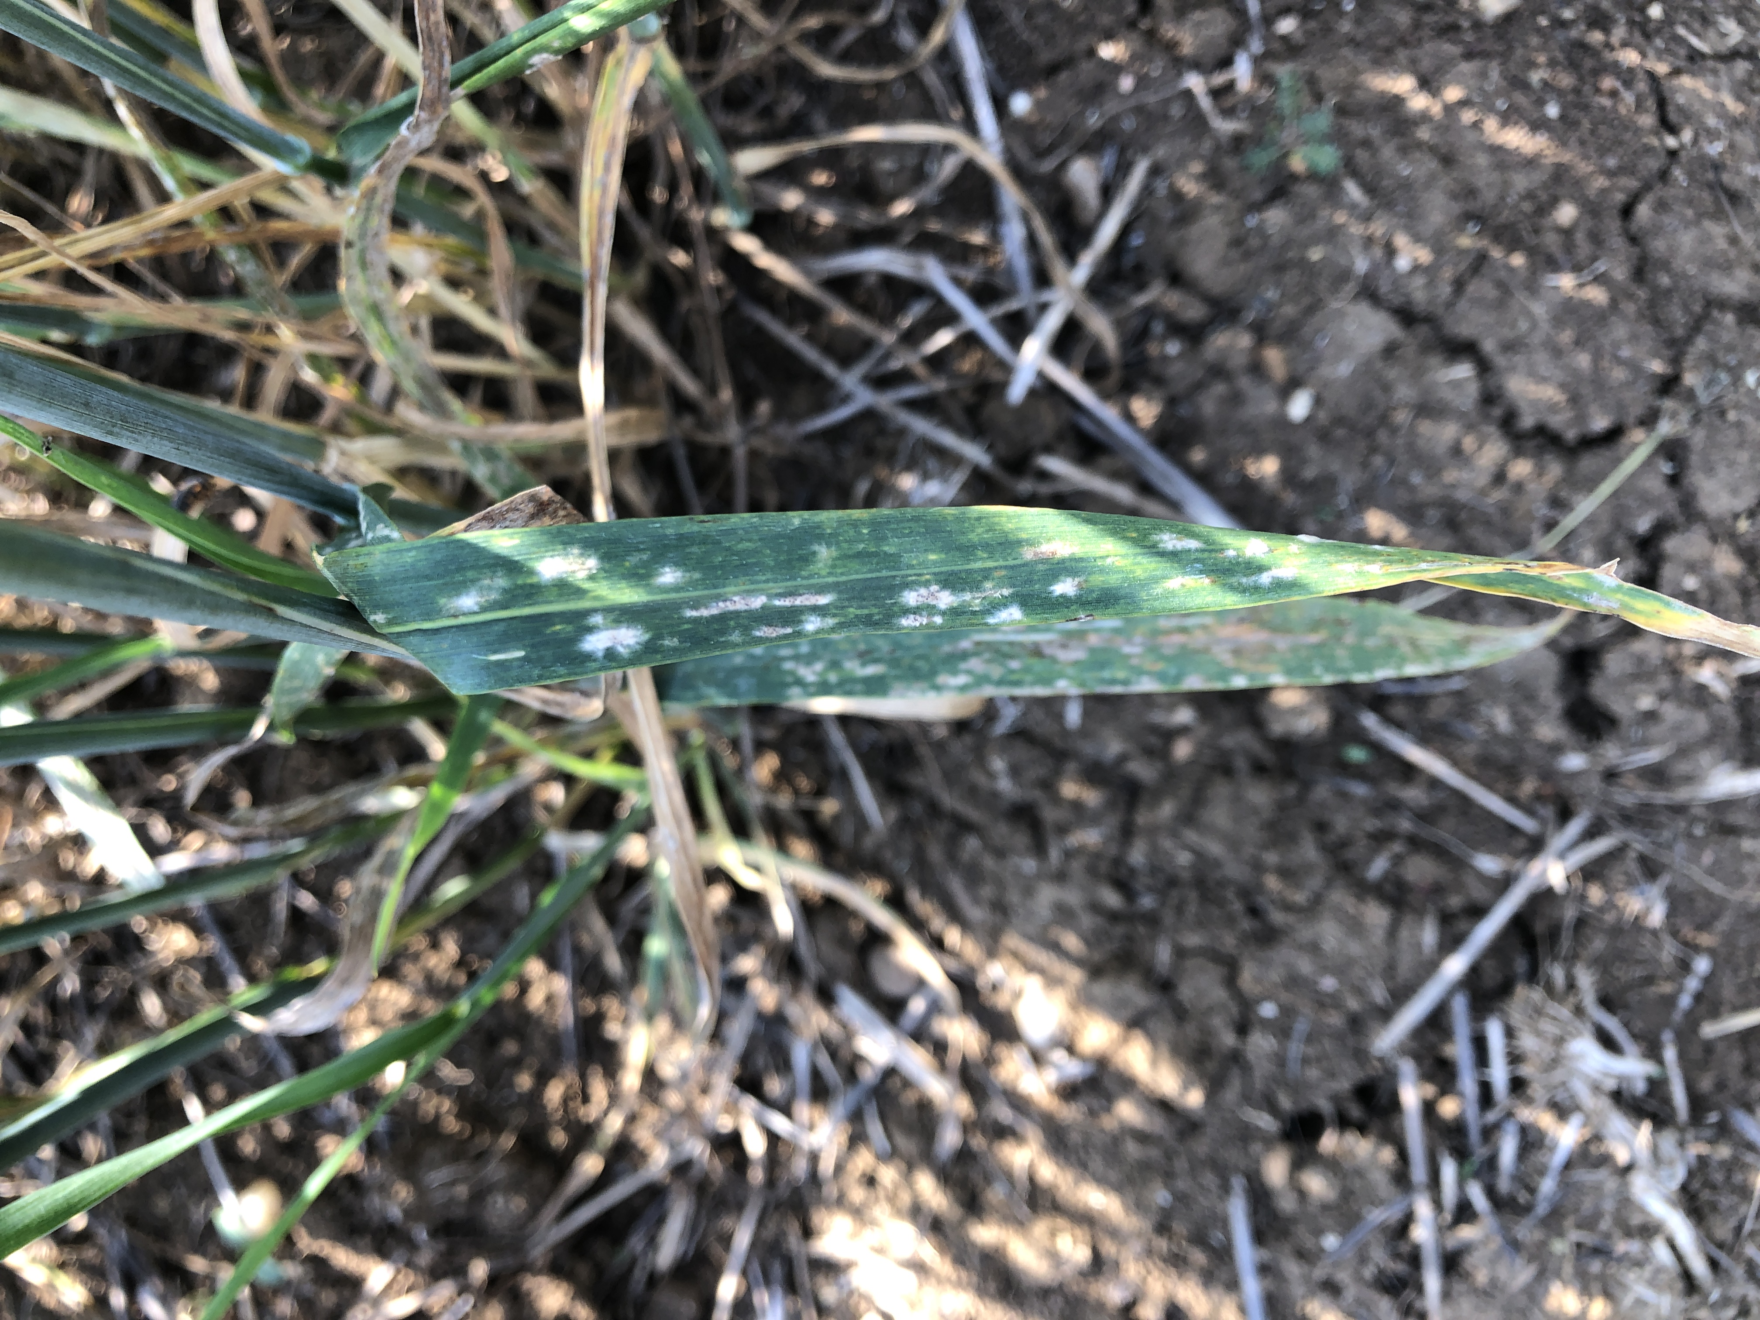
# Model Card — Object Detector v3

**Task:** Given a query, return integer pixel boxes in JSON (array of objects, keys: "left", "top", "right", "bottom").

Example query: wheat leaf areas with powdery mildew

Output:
[
  {"left": 382, "top": 103, "right": 479, "bottom": 161},
  {"left": 501, "top": 27, "right": 581, "bottom": 81},
  {"left": 687, "top": 575, "right": 1558, "bottom": 750},
  {"left": 394, "top": 430, "right": 1320, "bottom": 714}
]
